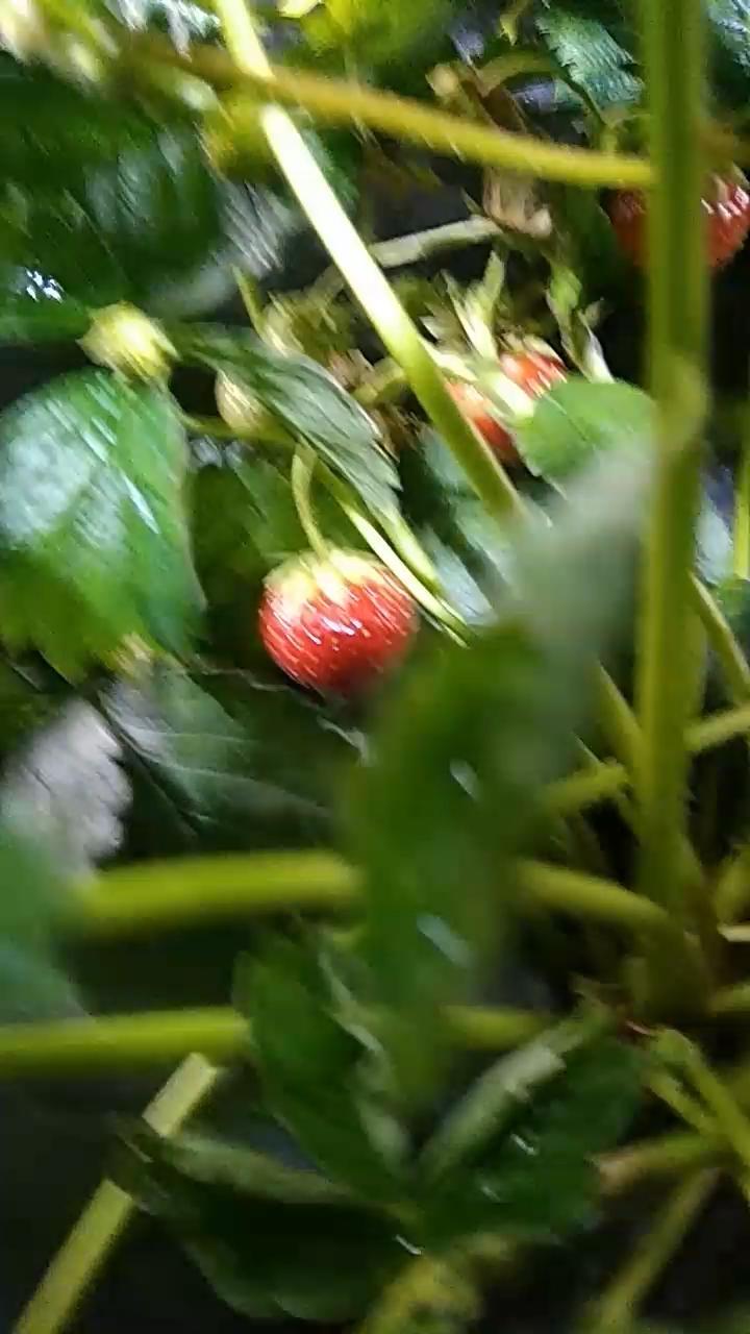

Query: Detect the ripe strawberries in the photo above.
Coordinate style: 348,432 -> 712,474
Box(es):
252,548 -> 436,704
426,327 -> 583,493
612,138 -> 750,287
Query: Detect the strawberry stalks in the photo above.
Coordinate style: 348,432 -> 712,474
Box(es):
282,240 -> 334,342
279,459 -> 367,598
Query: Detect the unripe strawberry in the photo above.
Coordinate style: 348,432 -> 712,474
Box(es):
215,301 -> 367,450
